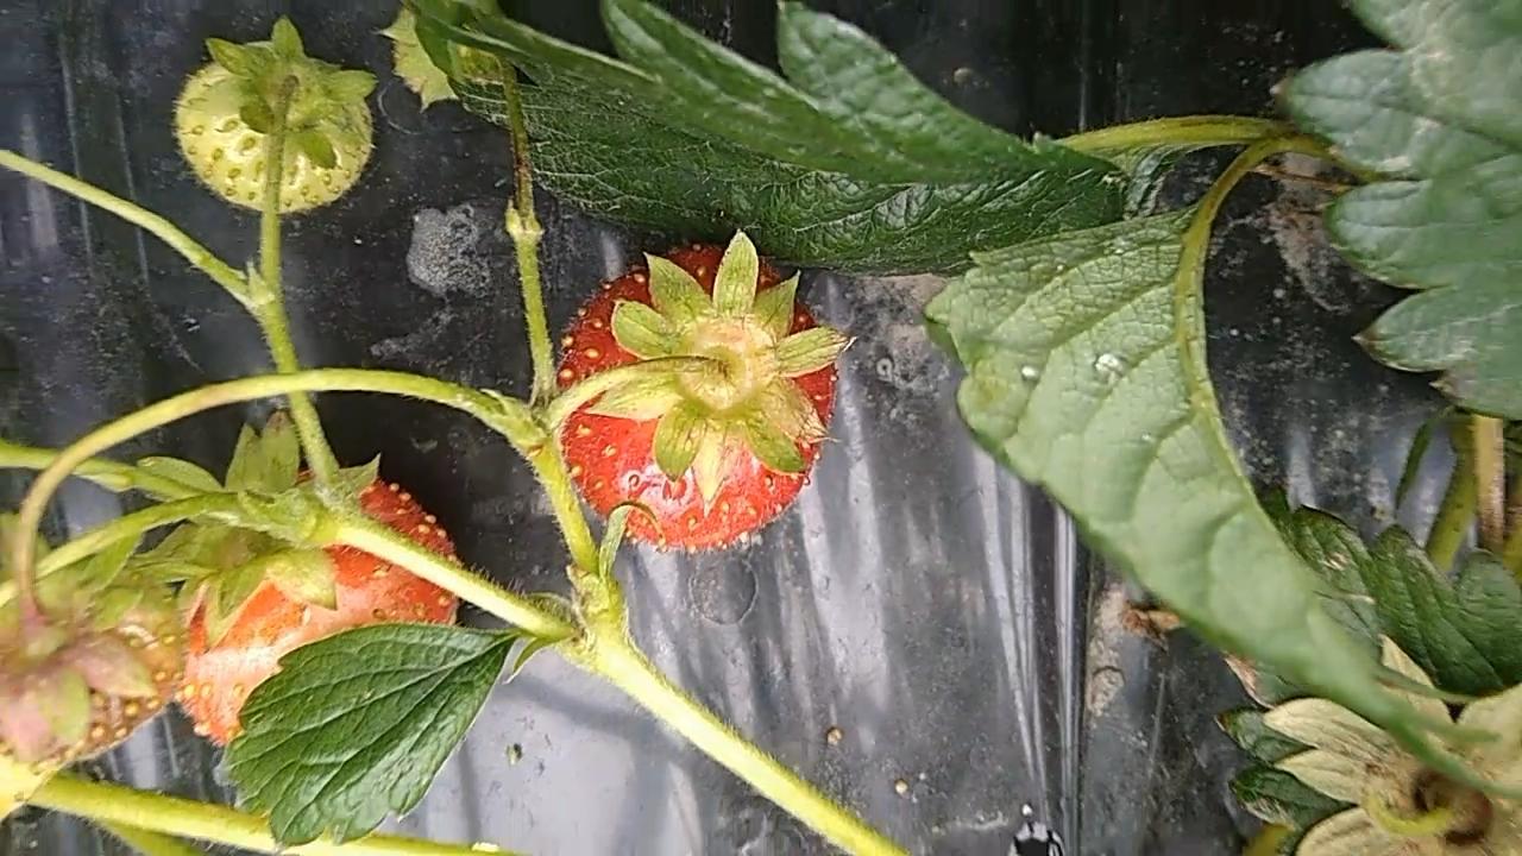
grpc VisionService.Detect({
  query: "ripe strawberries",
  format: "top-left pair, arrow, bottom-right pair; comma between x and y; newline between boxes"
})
544,243 -> 846,562
153,461 -> 475,773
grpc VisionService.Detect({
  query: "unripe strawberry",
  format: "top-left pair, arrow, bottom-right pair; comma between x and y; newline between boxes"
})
157,37 -> 376,222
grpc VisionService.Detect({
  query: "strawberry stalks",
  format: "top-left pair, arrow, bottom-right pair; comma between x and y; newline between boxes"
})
246,65 -> 312,206
534,350 -> 732,438
0,429 -> 308,560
